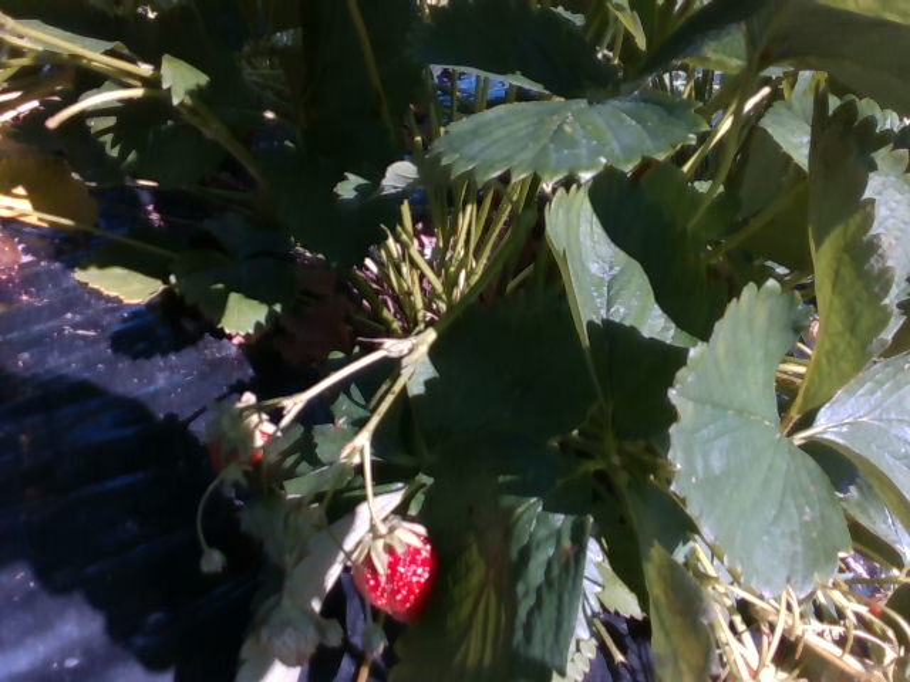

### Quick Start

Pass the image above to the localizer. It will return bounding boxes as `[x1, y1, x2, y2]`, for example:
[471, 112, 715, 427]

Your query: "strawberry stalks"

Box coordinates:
[353, 489, 398, 552]
[232, 381, 286, 418]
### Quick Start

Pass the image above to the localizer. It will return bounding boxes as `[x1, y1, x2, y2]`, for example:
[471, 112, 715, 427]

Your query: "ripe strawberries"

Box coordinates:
[190, 414, 286, 486]
[340, 518, 447, 627]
